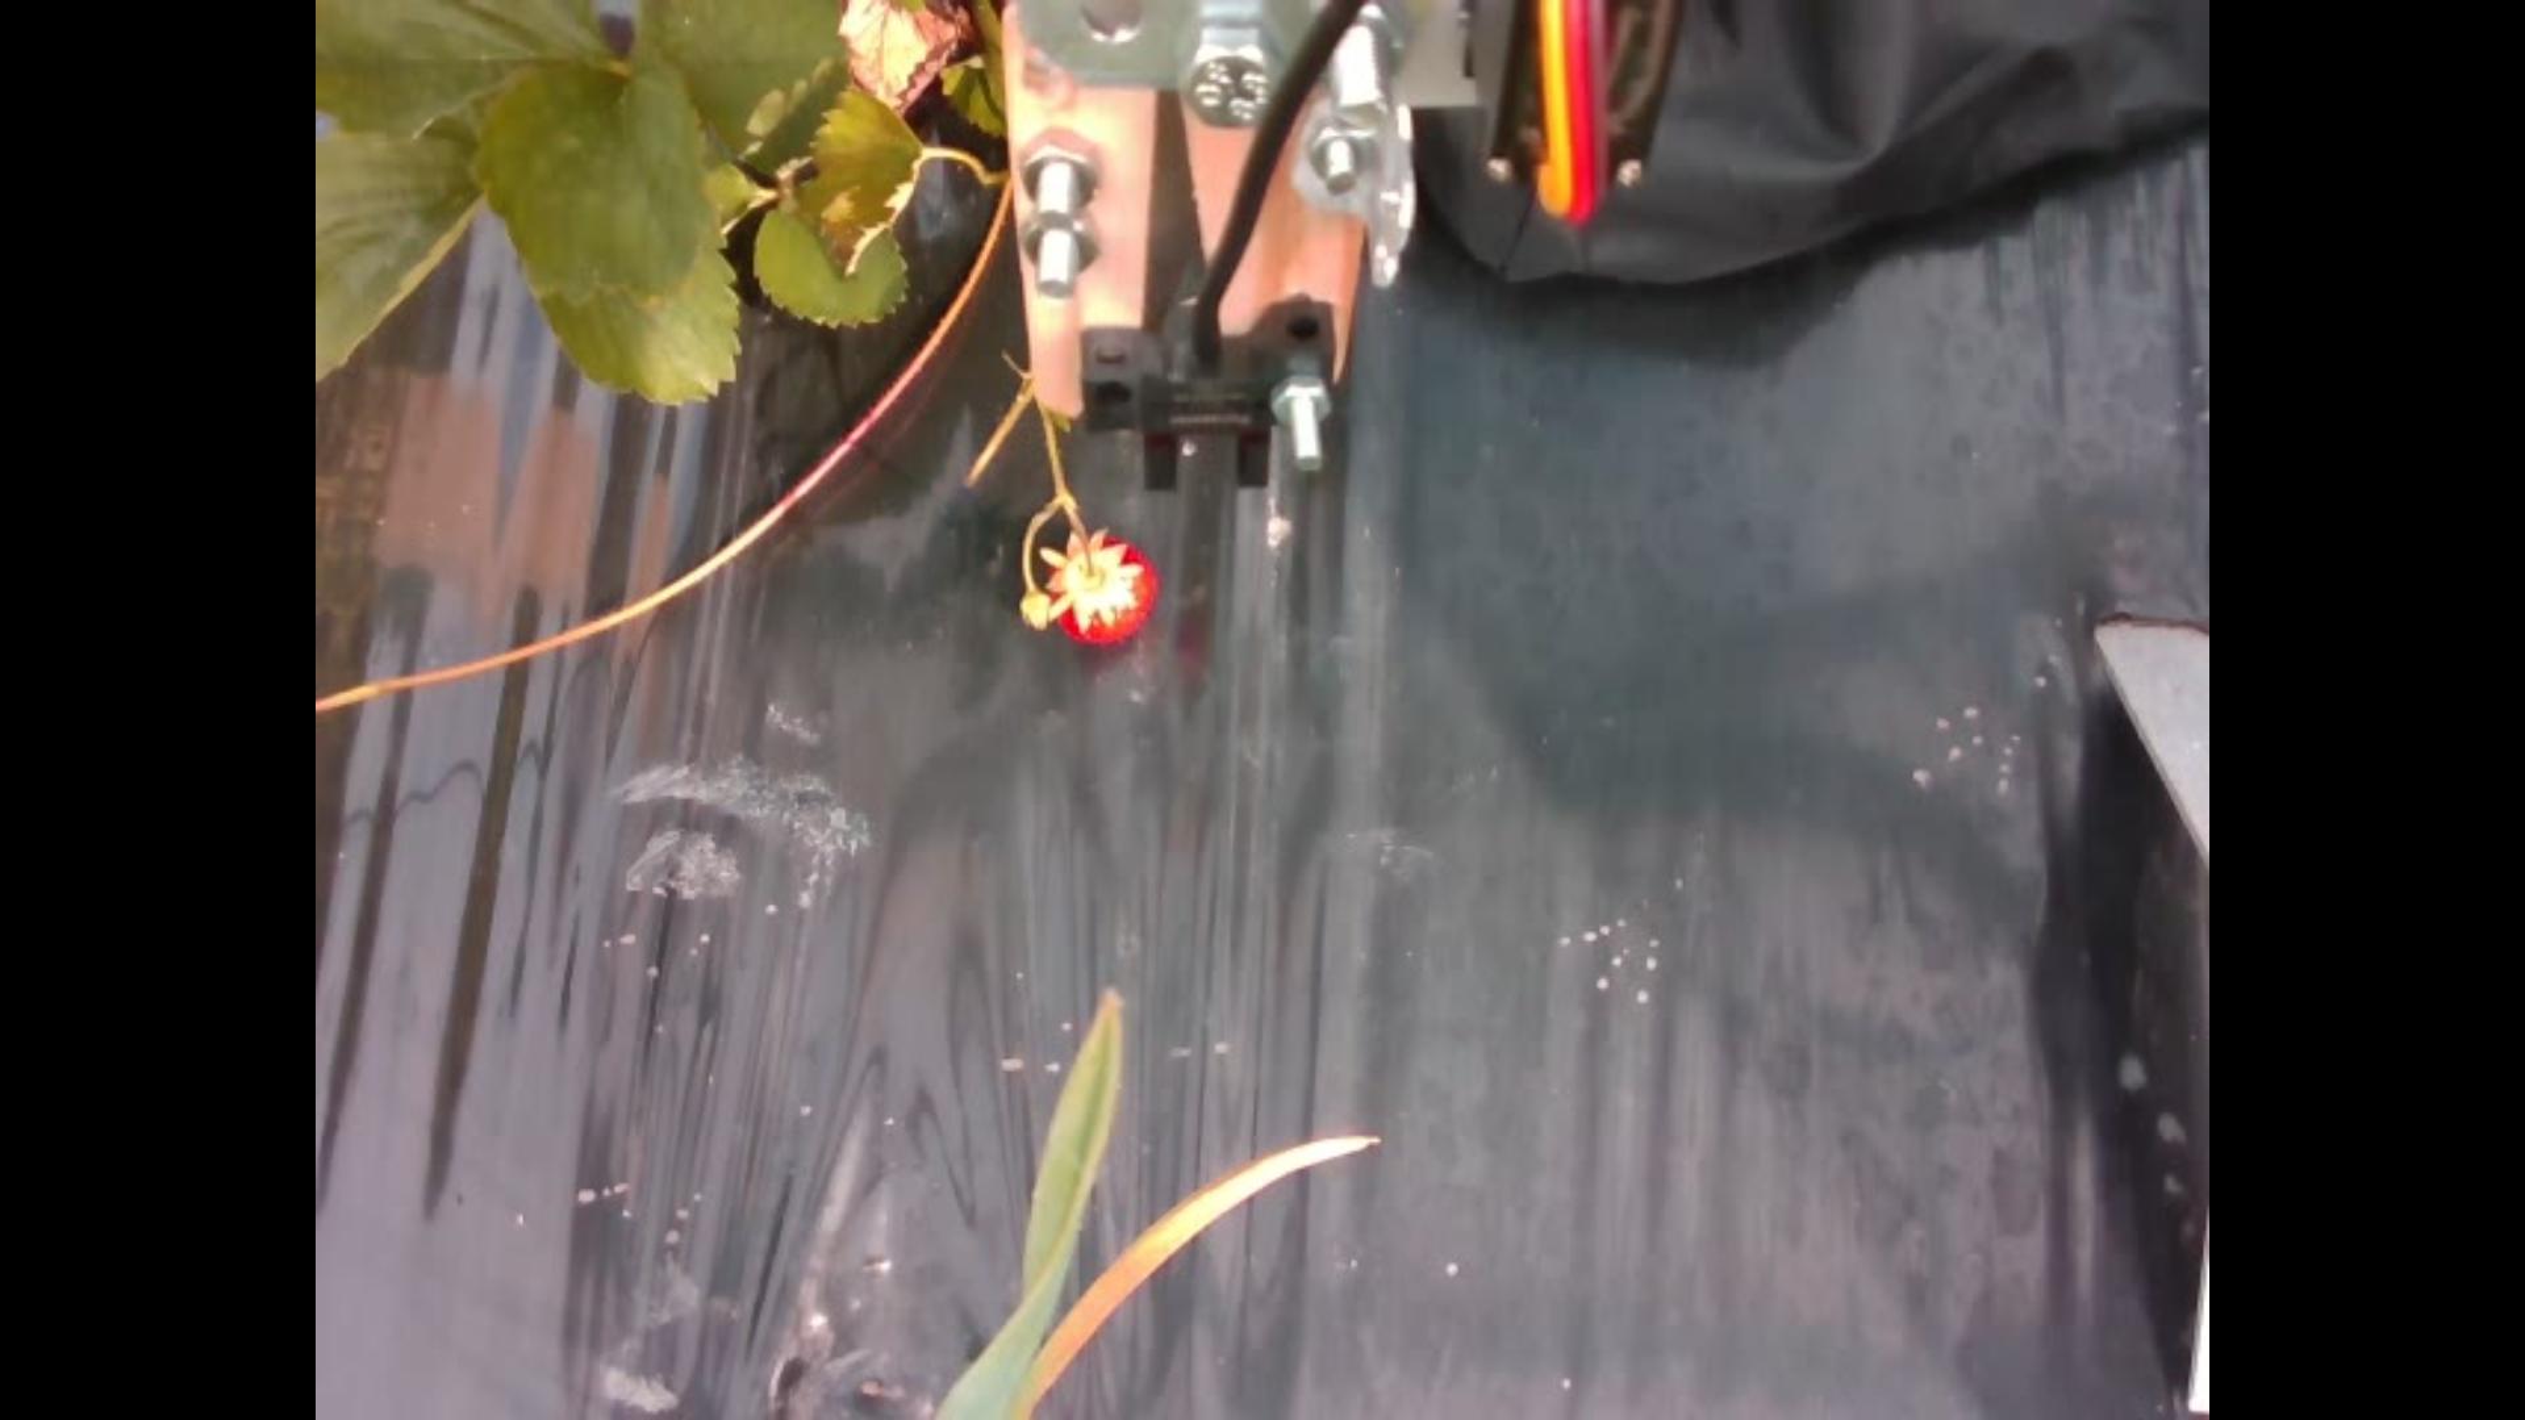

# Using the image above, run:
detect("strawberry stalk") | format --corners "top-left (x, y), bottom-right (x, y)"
top-left (1040, 429), bottom-right (1107, 593)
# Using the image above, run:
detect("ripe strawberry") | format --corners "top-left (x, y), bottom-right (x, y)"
top-left (1031, 536), bottom-right (1164, 656)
